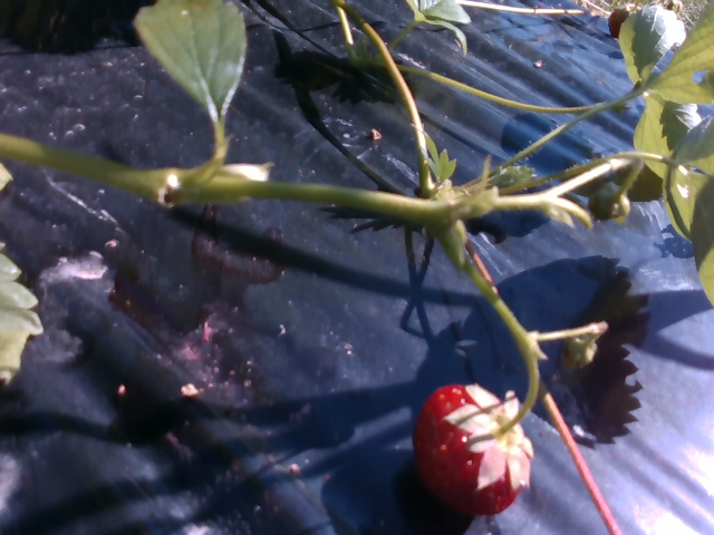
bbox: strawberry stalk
[480,332,546,461]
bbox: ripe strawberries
[610,3,633,37]
[396,379,543,515]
